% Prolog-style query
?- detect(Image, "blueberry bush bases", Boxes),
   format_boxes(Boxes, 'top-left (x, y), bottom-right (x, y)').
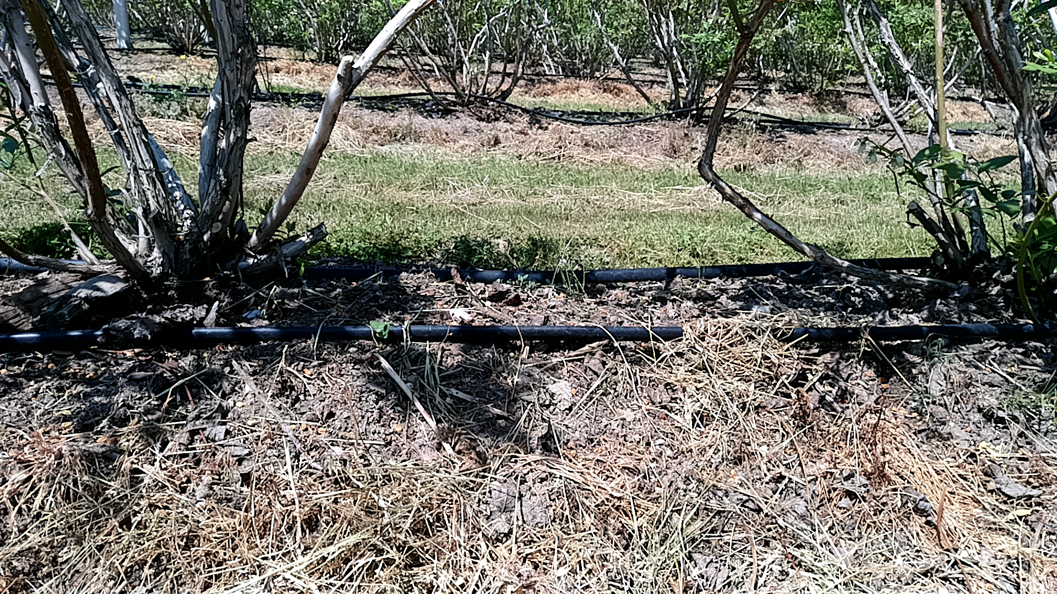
top-left (905, 177), bottom-right (1057, 334)
top-left (425, 64), bottom-right (516, 119)
top-left (642, 68), bottom-right (738, 134)
top-left (167, 27), bottom-right (208, 57)
top-left (789, 58), bottom-right (838, 101)
top-left (62, 148), bottom-right (333, 349)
